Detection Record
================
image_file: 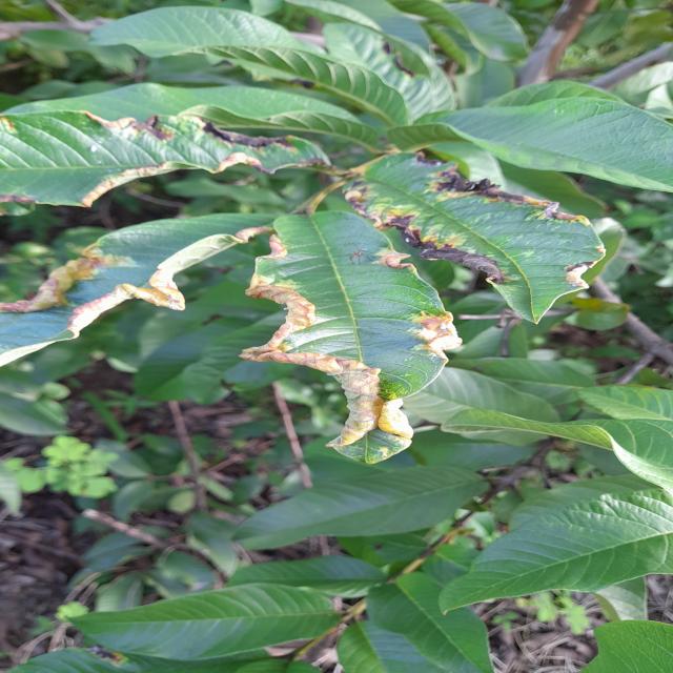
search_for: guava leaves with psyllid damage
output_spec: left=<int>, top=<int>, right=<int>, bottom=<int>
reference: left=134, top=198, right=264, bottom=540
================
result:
left=246, top=204, right=478, bottom=467
left=326, top=148, right=626, bottom=319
